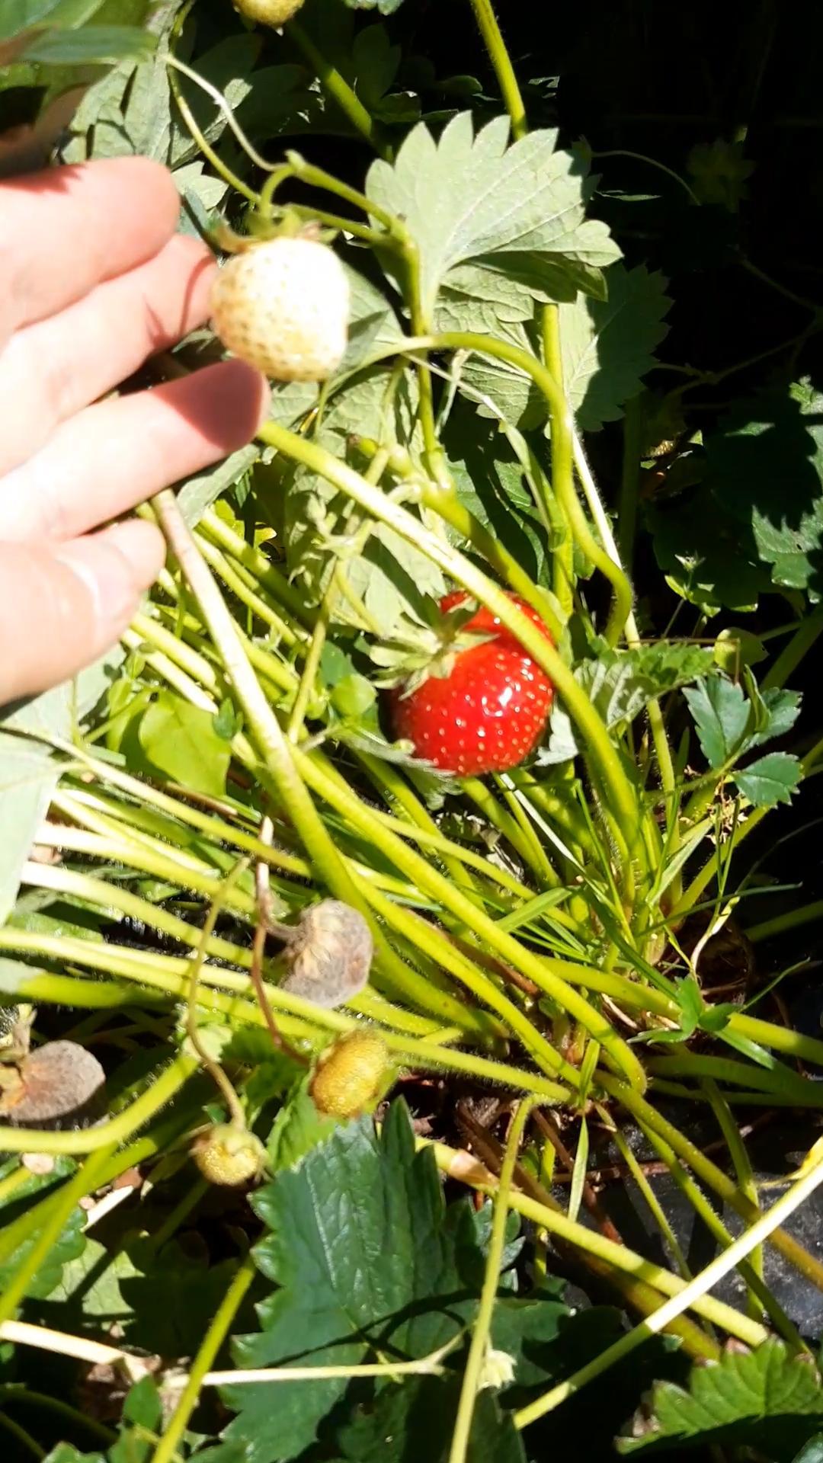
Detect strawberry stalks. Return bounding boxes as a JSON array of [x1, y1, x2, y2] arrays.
[[261, 1023, 358, 1077], [365, 561, 462, 678], [229, 149, 308, 255], [234, 879, 317, 956], [207, 1029, 247, 1131]]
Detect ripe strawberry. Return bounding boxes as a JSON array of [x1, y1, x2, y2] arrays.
[[370, 585, 567, 782]]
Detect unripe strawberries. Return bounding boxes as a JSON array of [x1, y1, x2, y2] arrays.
[[194, 1109, 268, 1184], [298, 1024, 404, 1123], [272, 888, 386, 1030], [205, 239, 358, 384]]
